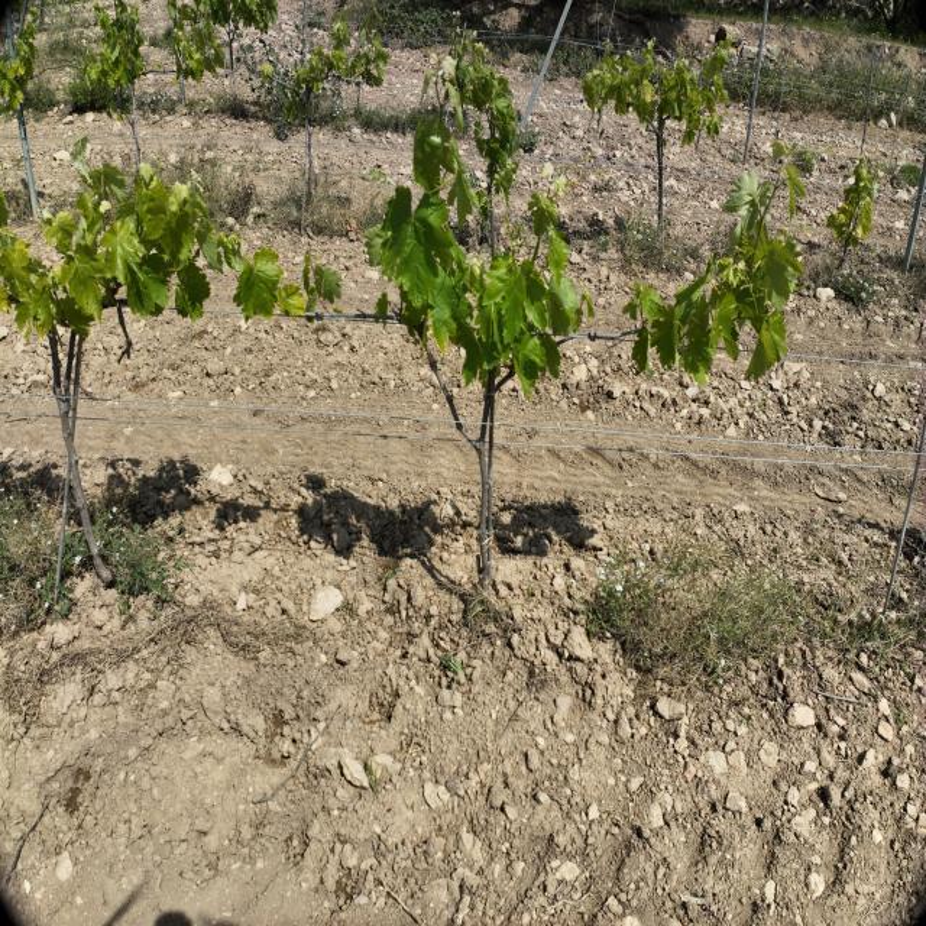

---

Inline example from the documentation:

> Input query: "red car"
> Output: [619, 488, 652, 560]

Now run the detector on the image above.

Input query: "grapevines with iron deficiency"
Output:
[0, 123, 294, 603]
[296, 69, 815, 629]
